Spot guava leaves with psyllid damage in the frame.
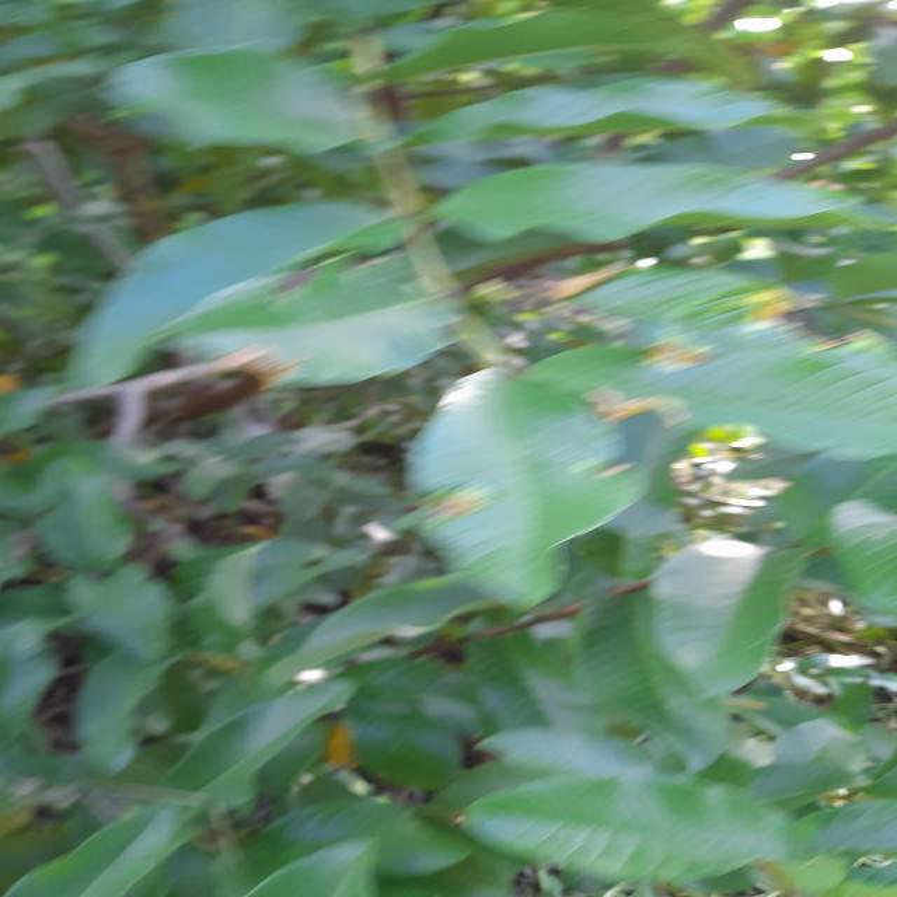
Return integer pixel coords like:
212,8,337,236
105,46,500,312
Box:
495,304,896,447
380,348,650,608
